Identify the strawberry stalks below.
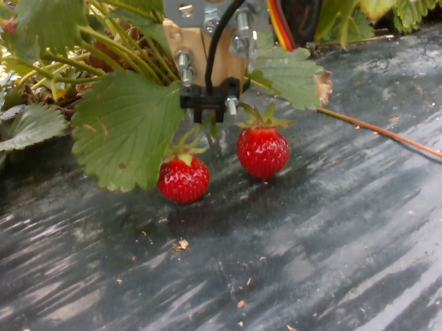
[173,122,201,165]
[232,104,270,138]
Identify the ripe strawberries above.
[239,125,288,178]
[159,153,210,202]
